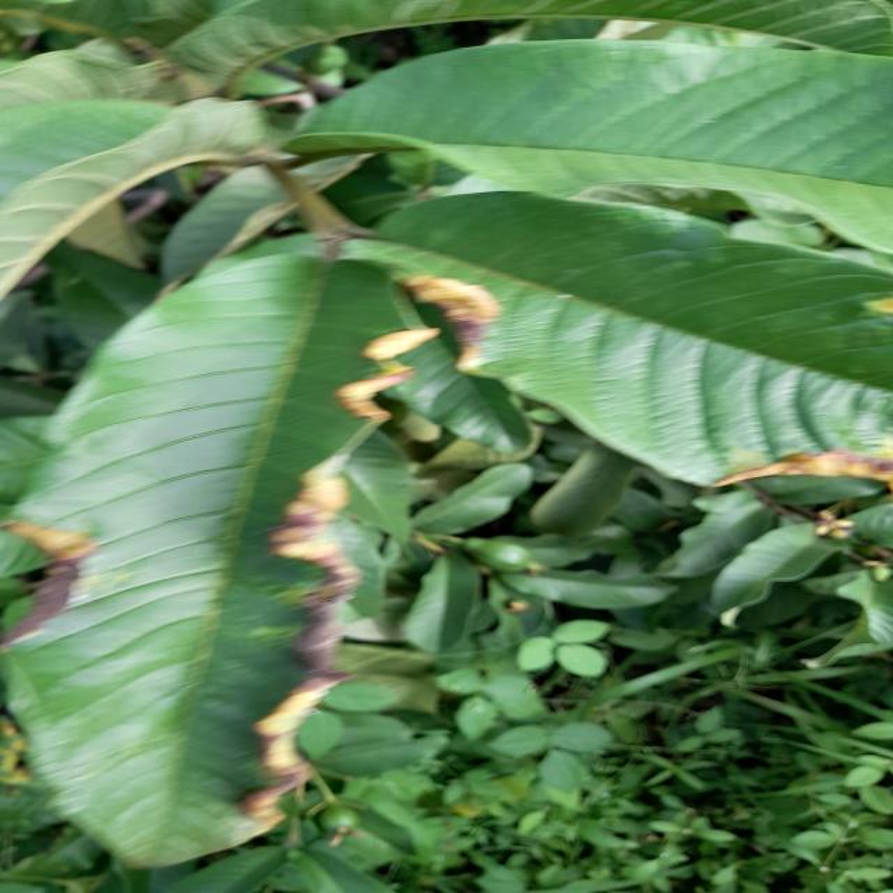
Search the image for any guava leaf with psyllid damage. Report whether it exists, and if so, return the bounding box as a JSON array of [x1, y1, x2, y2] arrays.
[[17, 244, 441, 860]]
